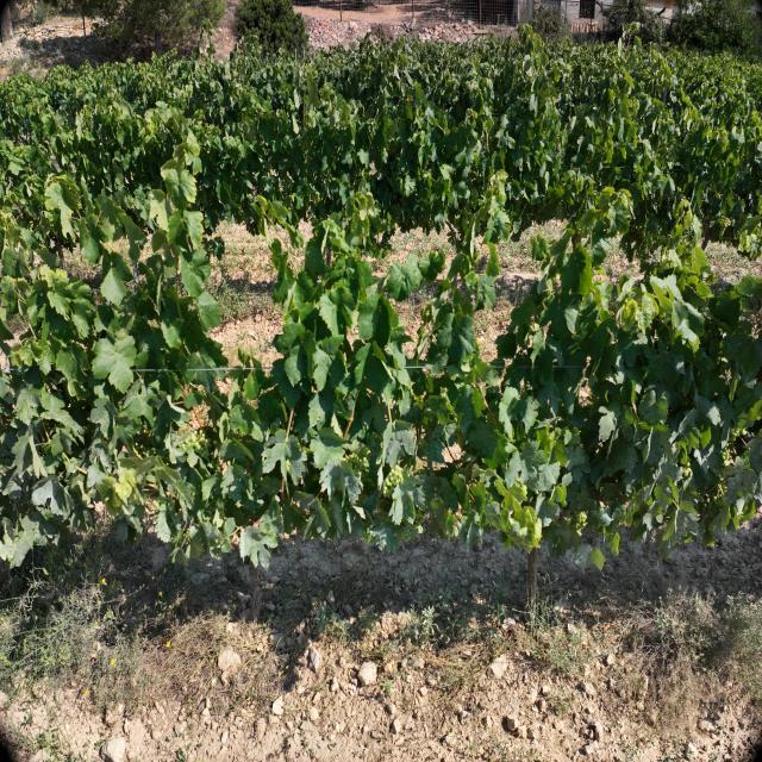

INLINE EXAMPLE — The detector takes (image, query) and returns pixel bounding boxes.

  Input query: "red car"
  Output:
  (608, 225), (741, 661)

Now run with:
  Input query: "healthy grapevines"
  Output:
(0, 186), (238, 617)
(246, 210), (762, 657)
